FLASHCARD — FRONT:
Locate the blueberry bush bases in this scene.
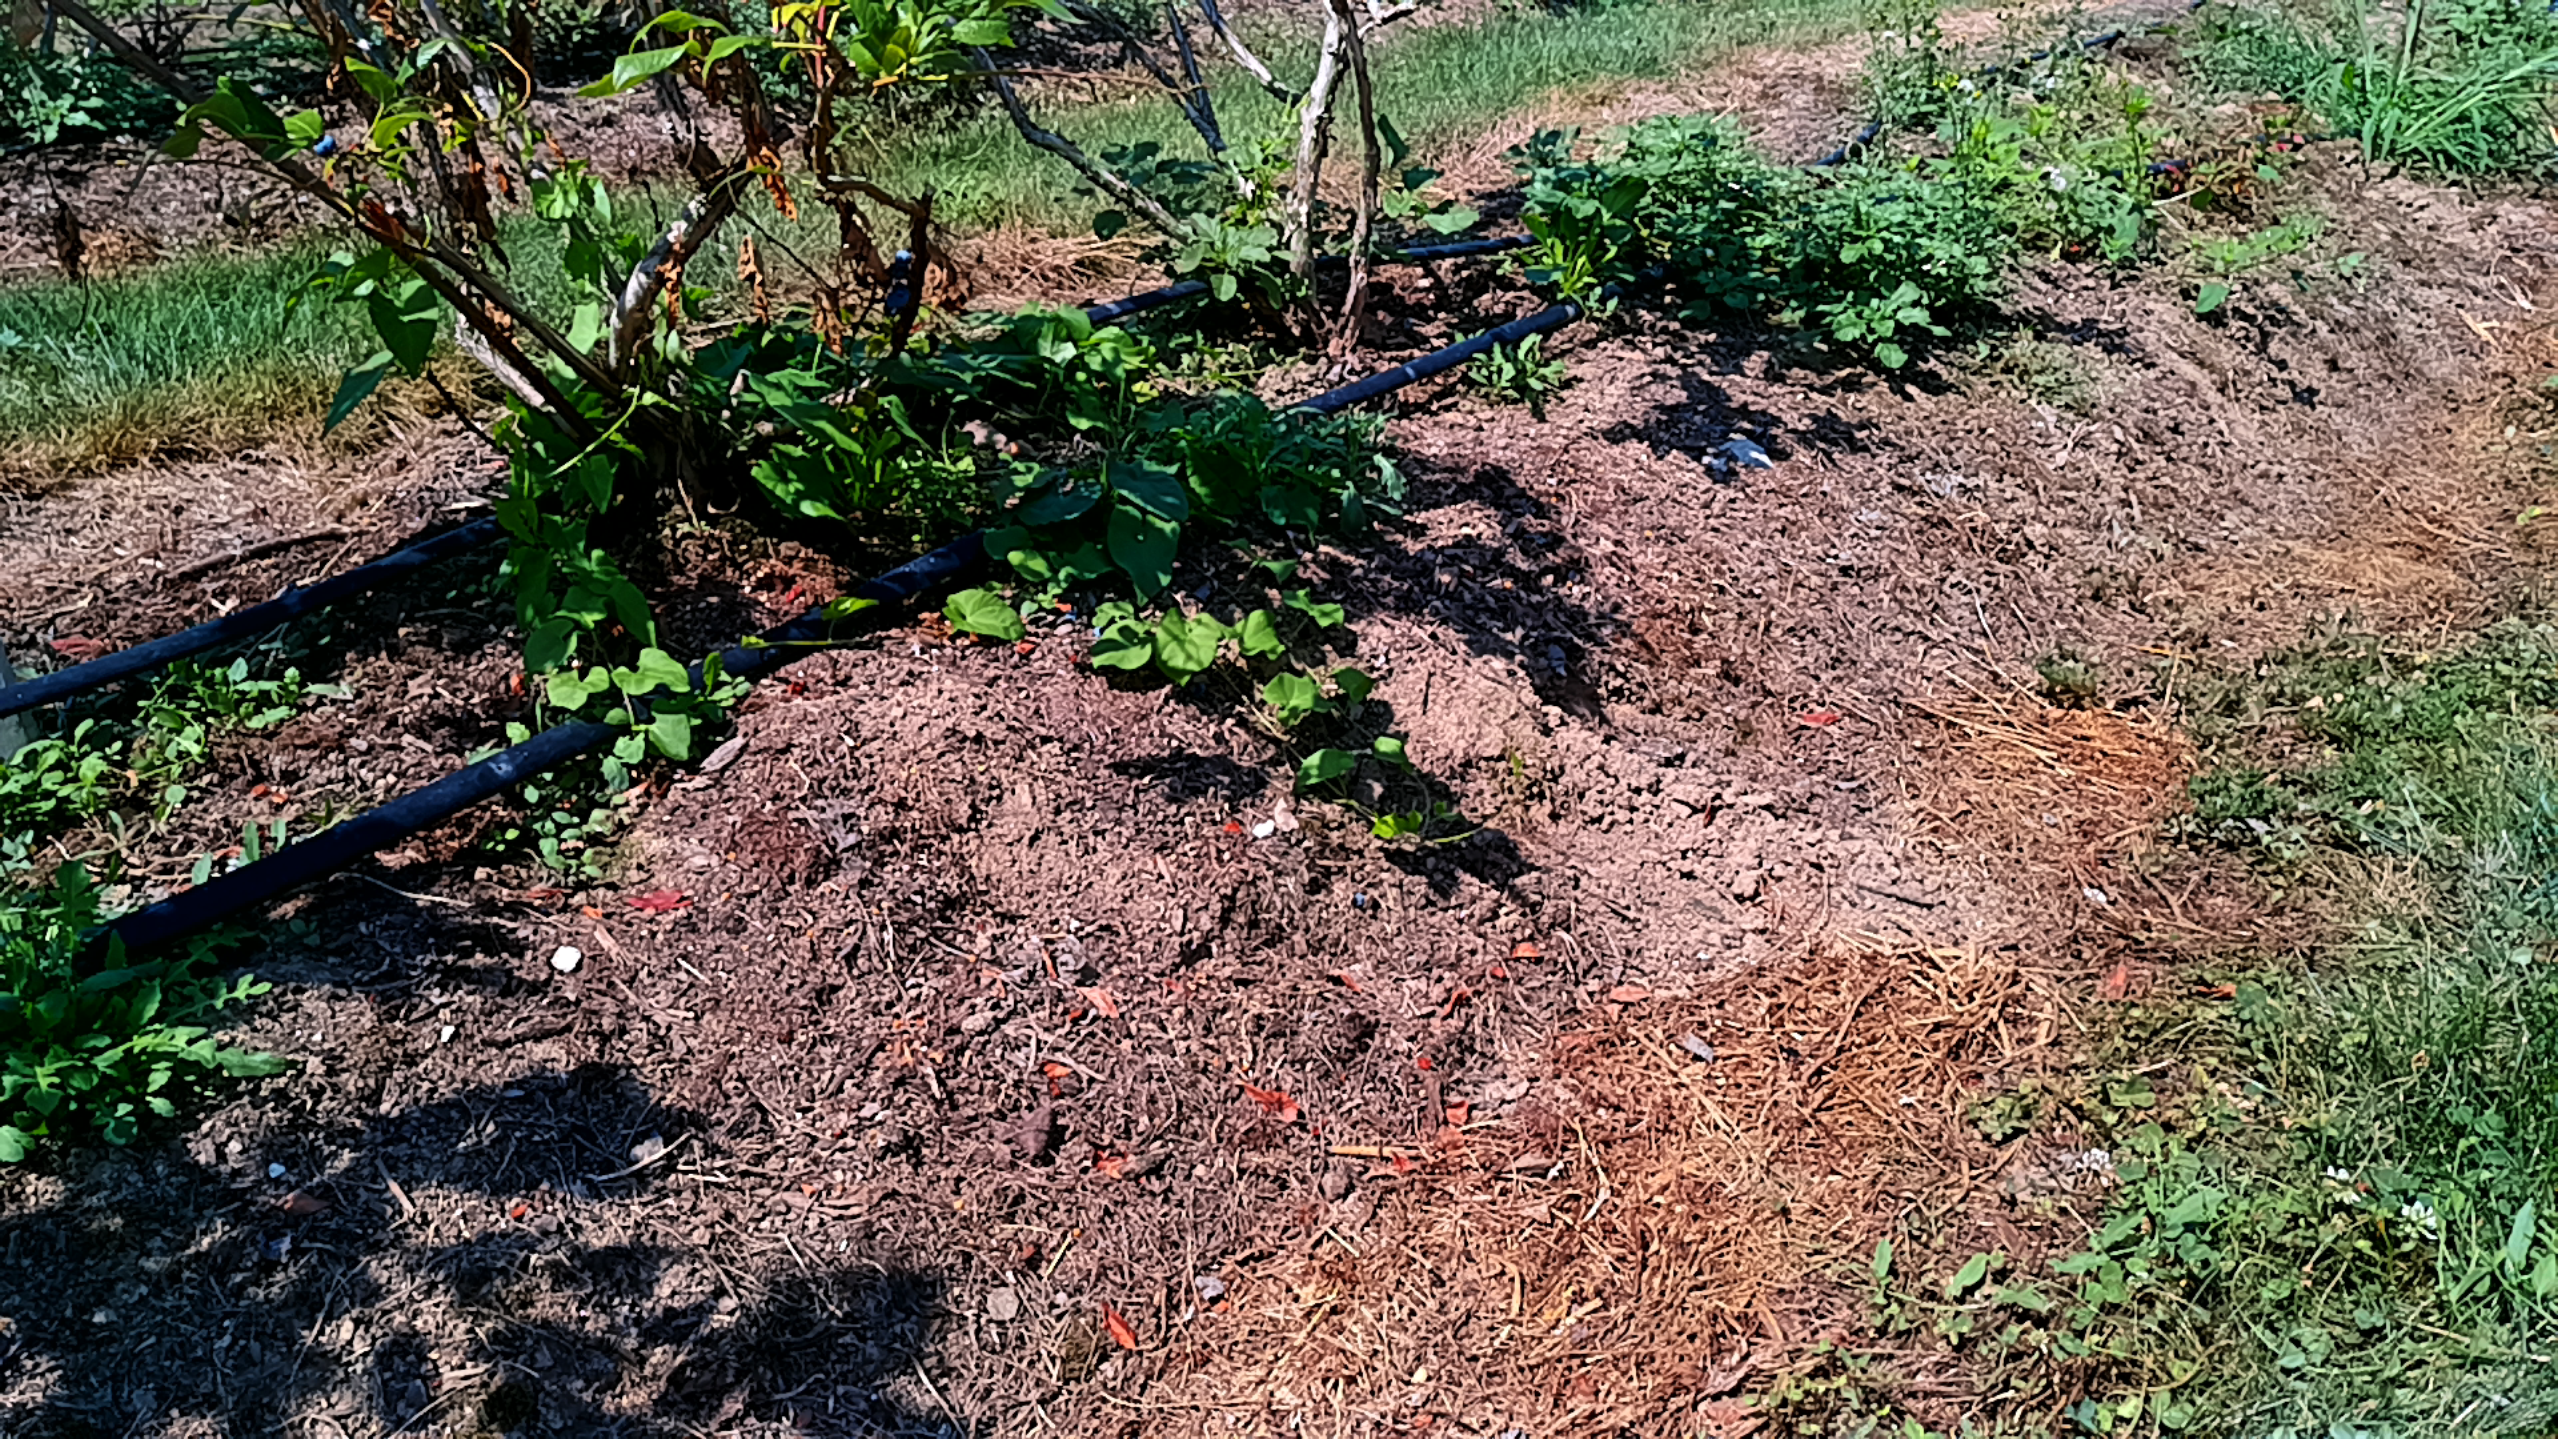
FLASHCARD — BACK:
[391,315,948,662]
[1108,89,1418,400]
